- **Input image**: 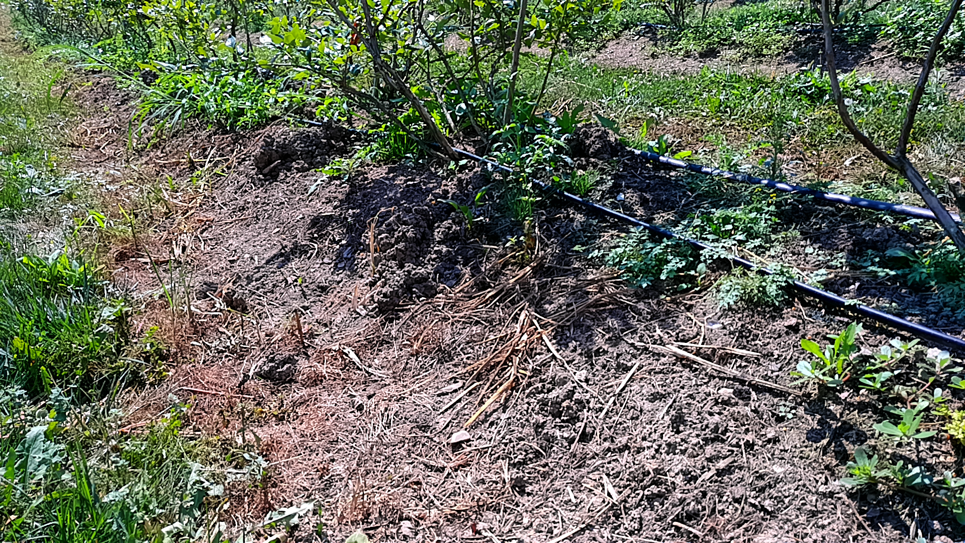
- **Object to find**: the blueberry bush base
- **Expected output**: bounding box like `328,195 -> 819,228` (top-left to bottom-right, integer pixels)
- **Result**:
329,44 -> 591,201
